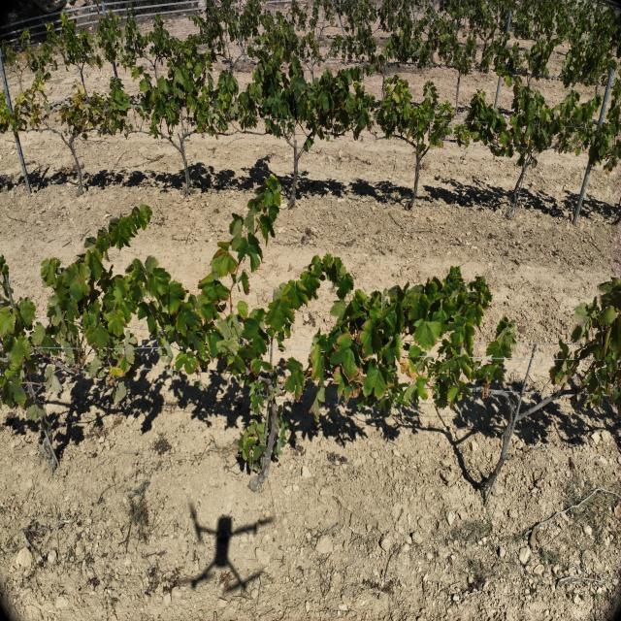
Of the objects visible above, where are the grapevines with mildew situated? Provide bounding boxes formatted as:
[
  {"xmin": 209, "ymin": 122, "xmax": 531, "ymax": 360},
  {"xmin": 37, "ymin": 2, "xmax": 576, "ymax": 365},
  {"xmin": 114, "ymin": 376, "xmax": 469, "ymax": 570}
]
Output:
[
  {"xmin": 377, "ymin": 258, "xmax": 621, "ymax": 511},
  {"xmin": 109, "ymin": 168, "xmax": 376, "ymax": 505},
  {"xmin": 0, "ymin": 203, "xmax": 156, "ymax": 484}
]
